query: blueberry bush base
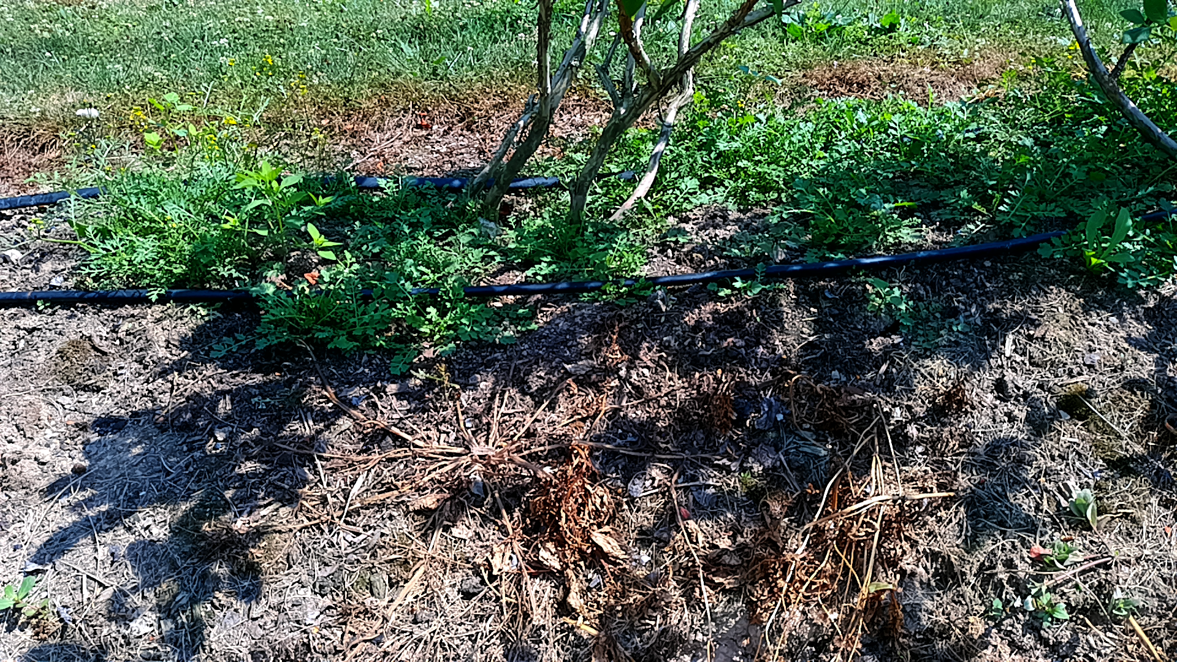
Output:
[442,48,693,288]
